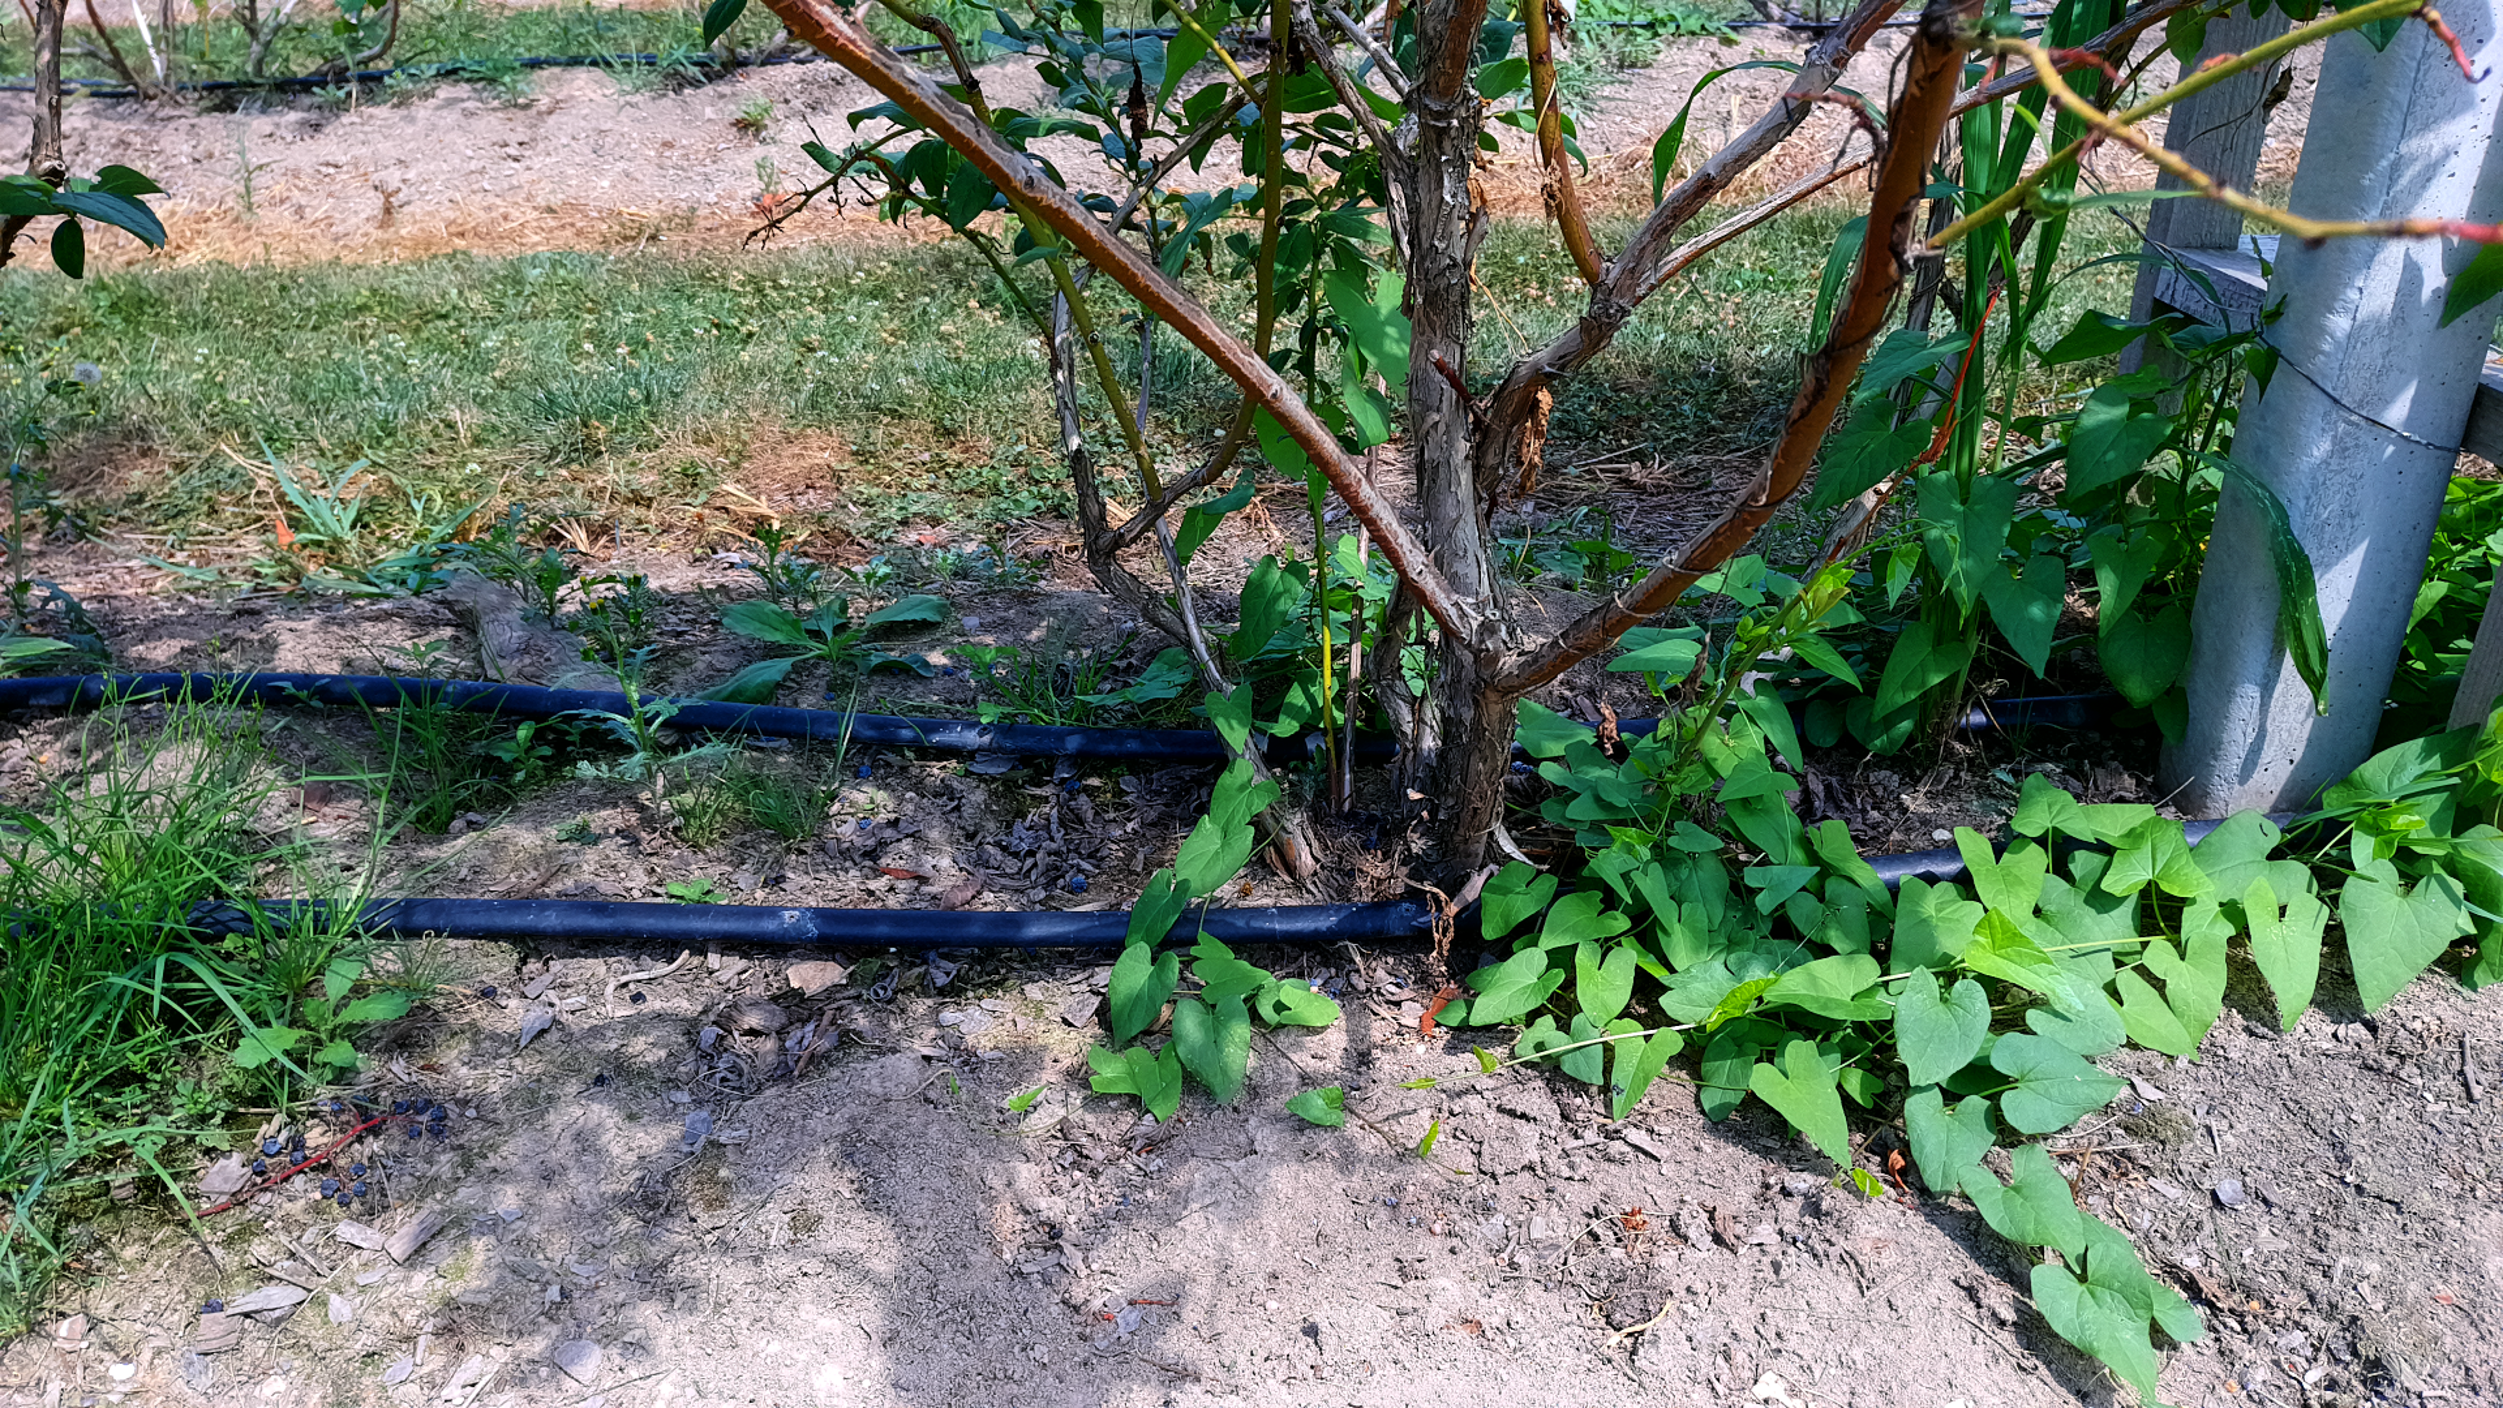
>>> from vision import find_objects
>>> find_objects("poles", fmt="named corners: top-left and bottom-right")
top-left (2193, 0), bottom-right (2503, 853)
top-left (2111, 0), bottom-right (2268, 392)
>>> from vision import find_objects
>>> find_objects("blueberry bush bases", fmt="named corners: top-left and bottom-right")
top-left (1001, 399), bottom-right (1924, 1158)
top-left (93, 46), bottom-right (232, 128)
